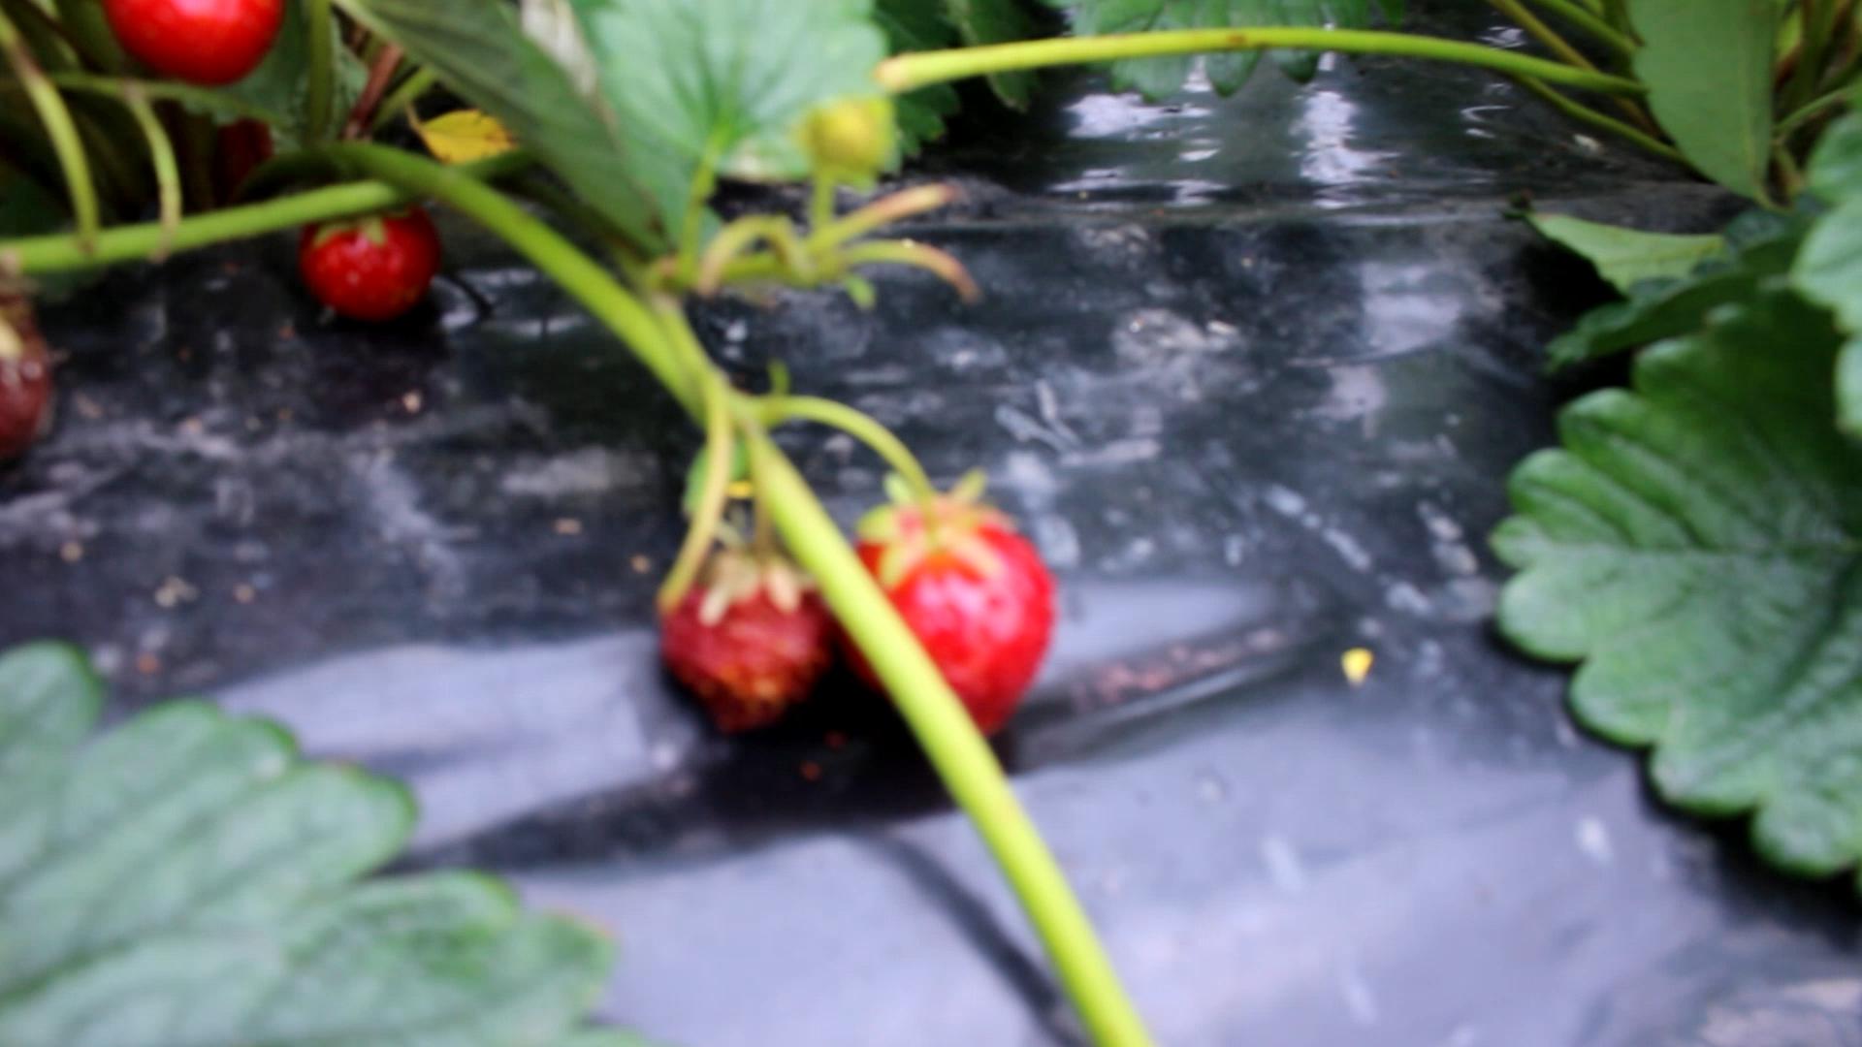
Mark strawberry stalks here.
[684,470,787,603]
[761,404,946,527]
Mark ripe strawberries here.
[622,537,831,739]
[837,508,1077,746]
[289,191,459,332]
[67,0,334,104]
